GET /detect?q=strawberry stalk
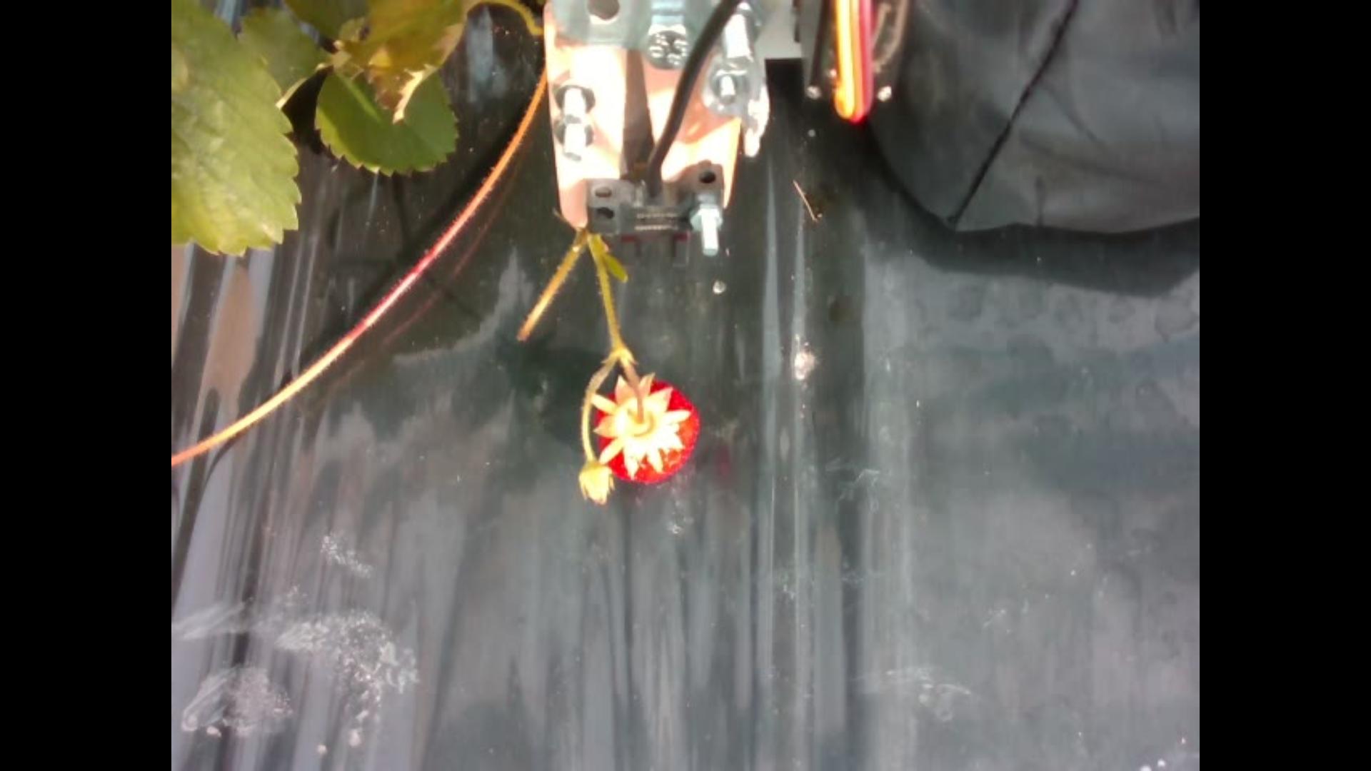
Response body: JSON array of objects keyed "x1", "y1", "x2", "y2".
[{"x1": 593, "y1": 255, "x2": 653, "y2": 438}]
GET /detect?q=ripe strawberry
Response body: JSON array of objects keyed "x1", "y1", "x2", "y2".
[{"x1": 571, "y1": 360, "x2": 707, "y2": 498}]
